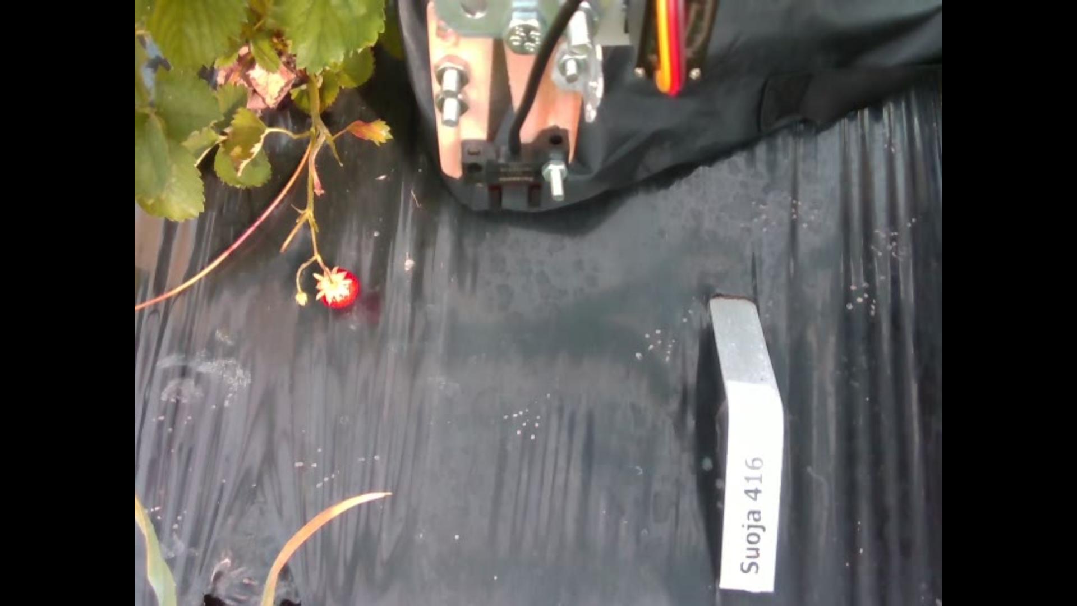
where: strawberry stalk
[306,216,337,284]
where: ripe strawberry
[307,261,375,322]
